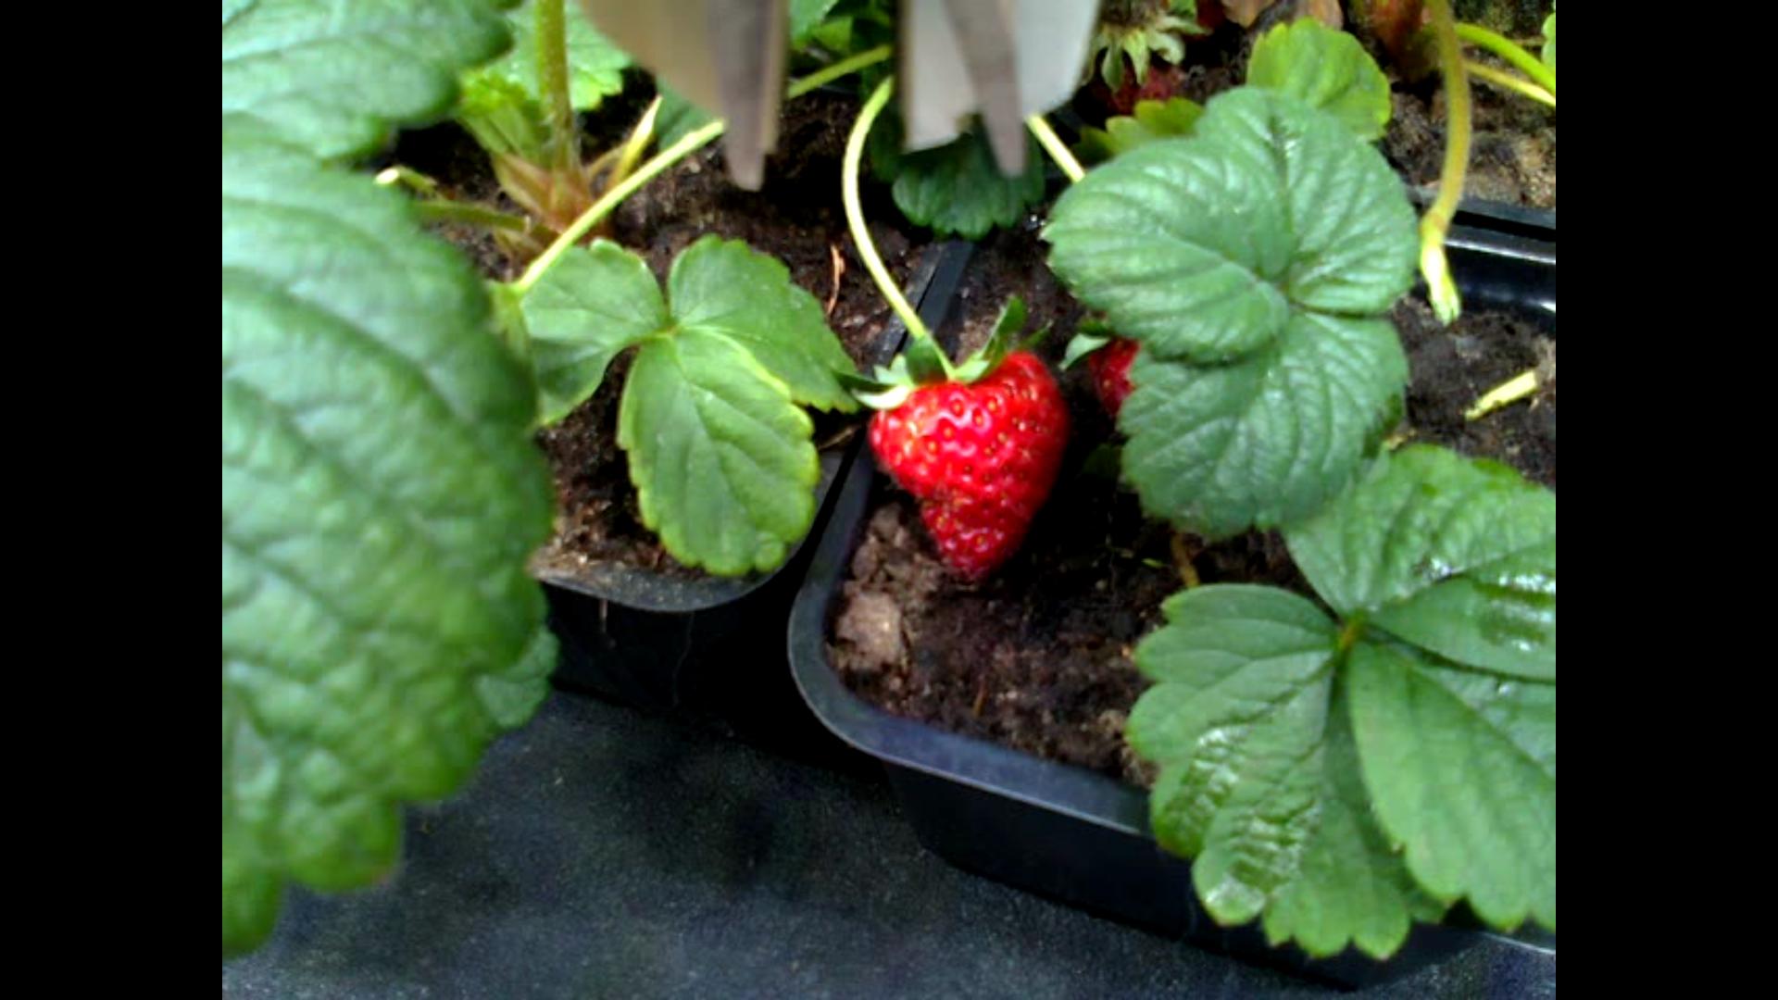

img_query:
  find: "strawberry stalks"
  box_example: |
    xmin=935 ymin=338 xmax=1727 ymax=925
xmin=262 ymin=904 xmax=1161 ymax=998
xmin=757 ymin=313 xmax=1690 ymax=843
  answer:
xmin=844 ymin=172 xmax=1004 ymax=422
xmin=1009 ymin=102 xmax=1186 ymax=340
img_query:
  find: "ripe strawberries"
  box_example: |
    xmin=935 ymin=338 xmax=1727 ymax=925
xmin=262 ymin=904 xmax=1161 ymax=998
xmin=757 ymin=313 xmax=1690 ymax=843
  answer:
xmin=1090 ymin=301 xmax=1288 ymax=454
xmin=850 ymin=344 xmax=1091 ymax=599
